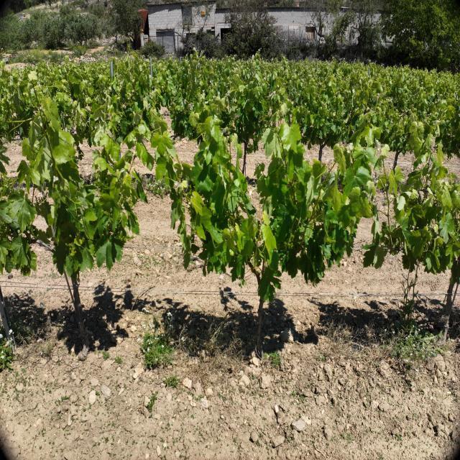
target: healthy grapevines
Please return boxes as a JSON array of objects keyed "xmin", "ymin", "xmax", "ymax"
[
  {"xmin": 152, "ymin": 101, "xmax": 387, "ymax": 371},
  {"xmin": 0, "ymin": 93, "xmax": 159, "ymax": 344},
  {"xmin": 368, "ymin": 140, "xmax": 460, "ymax": 351}
]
